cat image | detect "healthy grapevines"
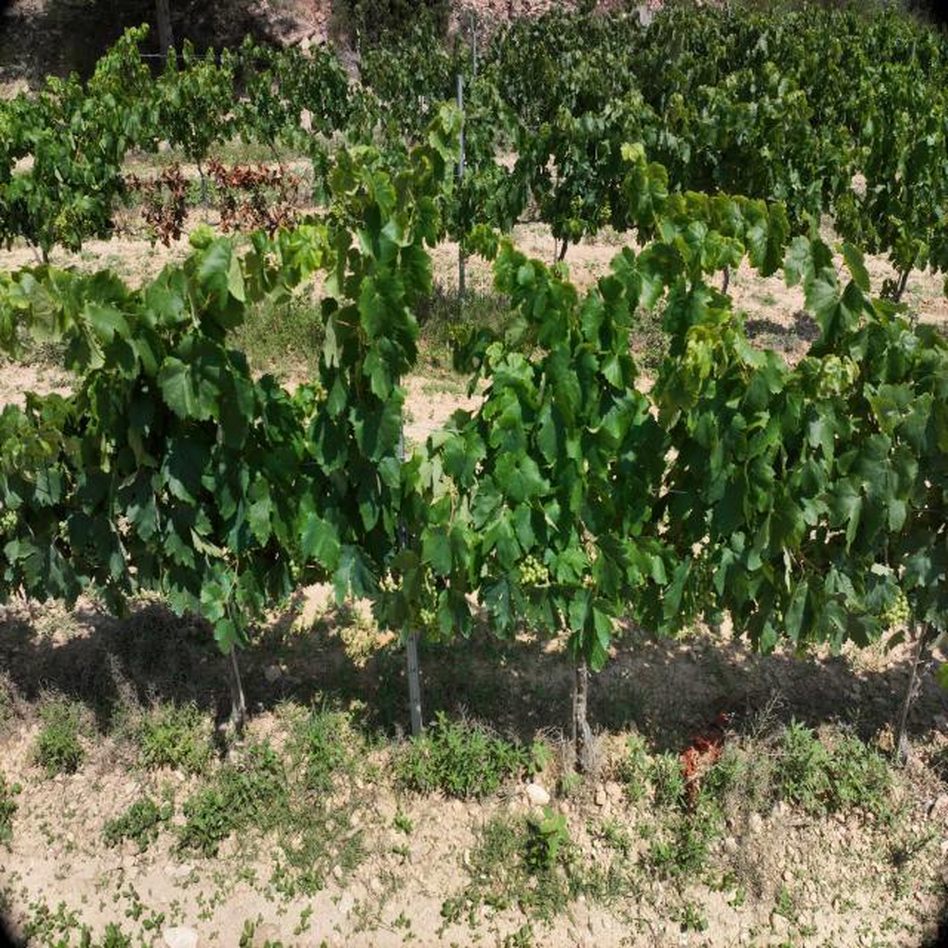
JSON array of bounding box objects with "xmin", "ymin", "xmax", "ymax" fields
[
  {"xmin": 384, "ymin": 271, "xmax": 667, "ymax": 807},
  {"xmin": 664, "ymin": 233, "xmax": 948, "ymax": 816},
  {"xmin": 0, "ymin": 232, "xmax": 376, "ymax": 775}
]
